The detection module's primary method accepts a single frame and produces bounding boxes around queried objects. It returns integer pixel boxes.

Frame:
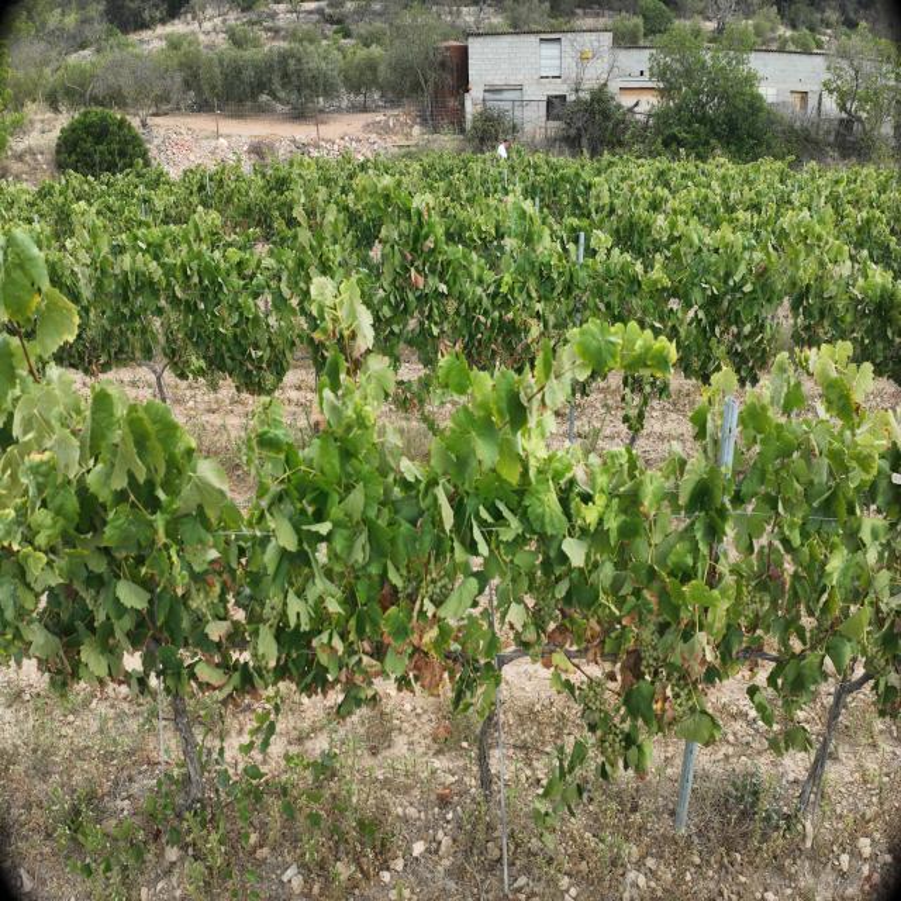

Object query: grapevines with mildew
[691,388,901,862]
[0,383,335,850]
[315,373,704,845]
